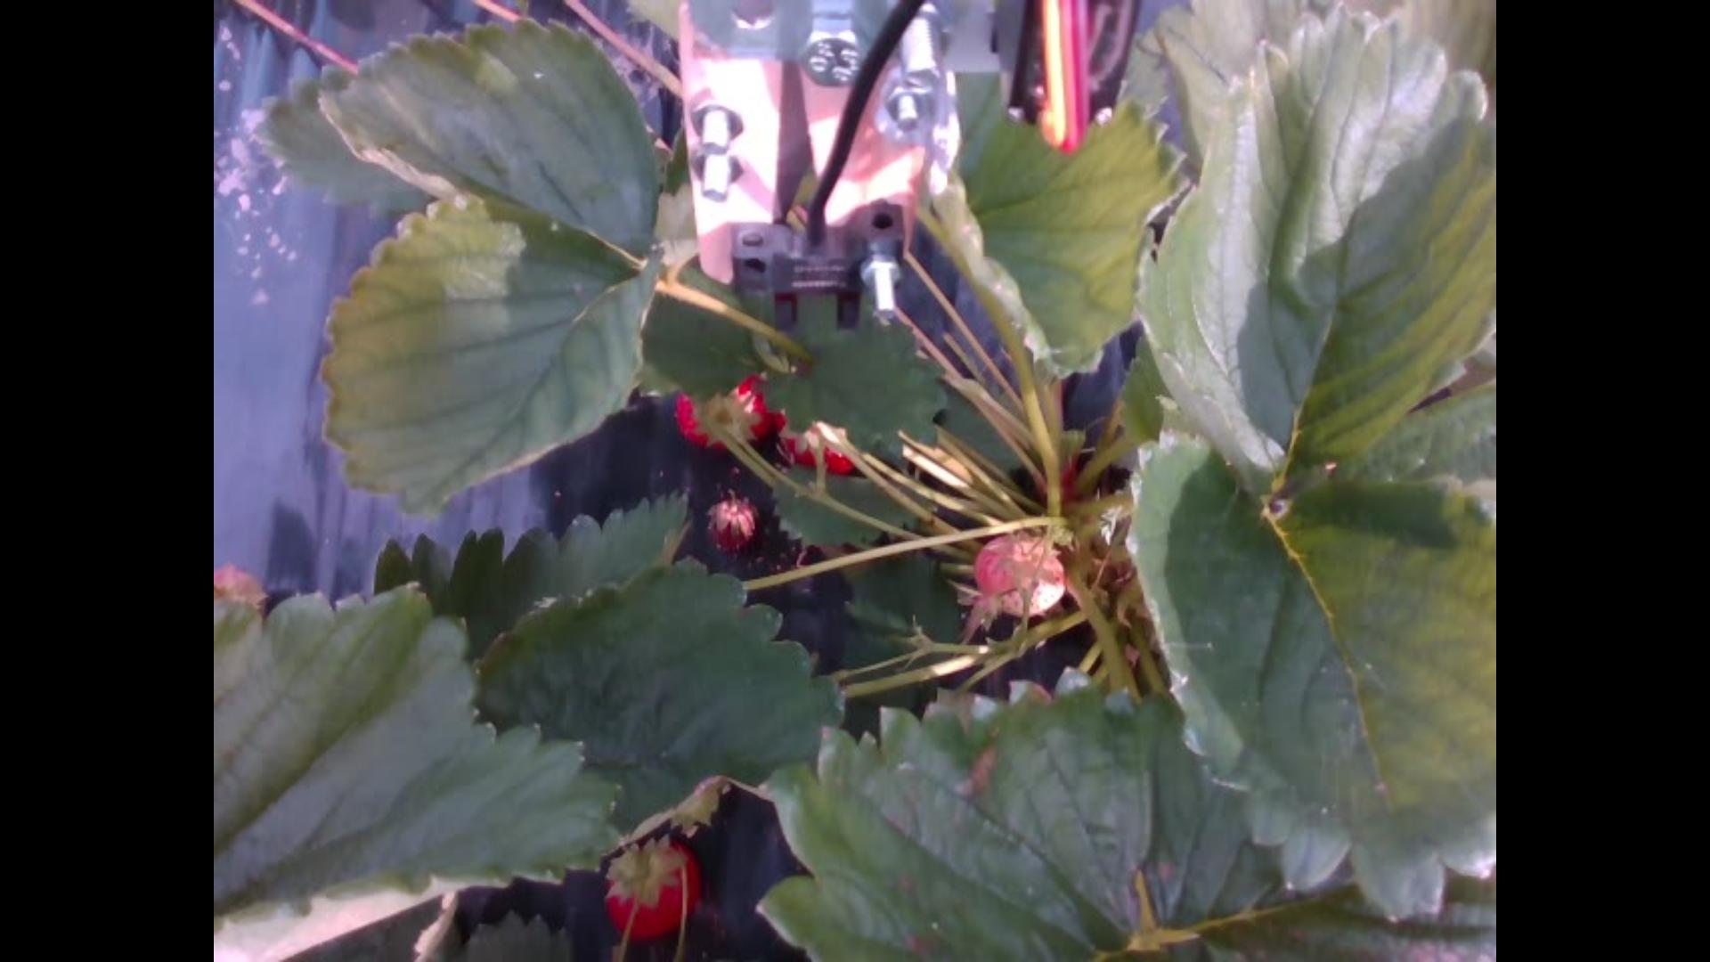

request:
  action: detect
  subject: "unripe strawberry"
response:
[974,528,1062,627]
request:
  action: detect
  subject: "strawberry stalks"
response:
[619,854,659,950]
[788,420,883,472]
[715,395,768,471]
[1012,512,1041,587]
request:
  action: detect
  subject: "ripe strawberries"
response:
[670,341,766,456]
[600,833,702,946]
[773,363,863,477]
[701,492,764,554]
